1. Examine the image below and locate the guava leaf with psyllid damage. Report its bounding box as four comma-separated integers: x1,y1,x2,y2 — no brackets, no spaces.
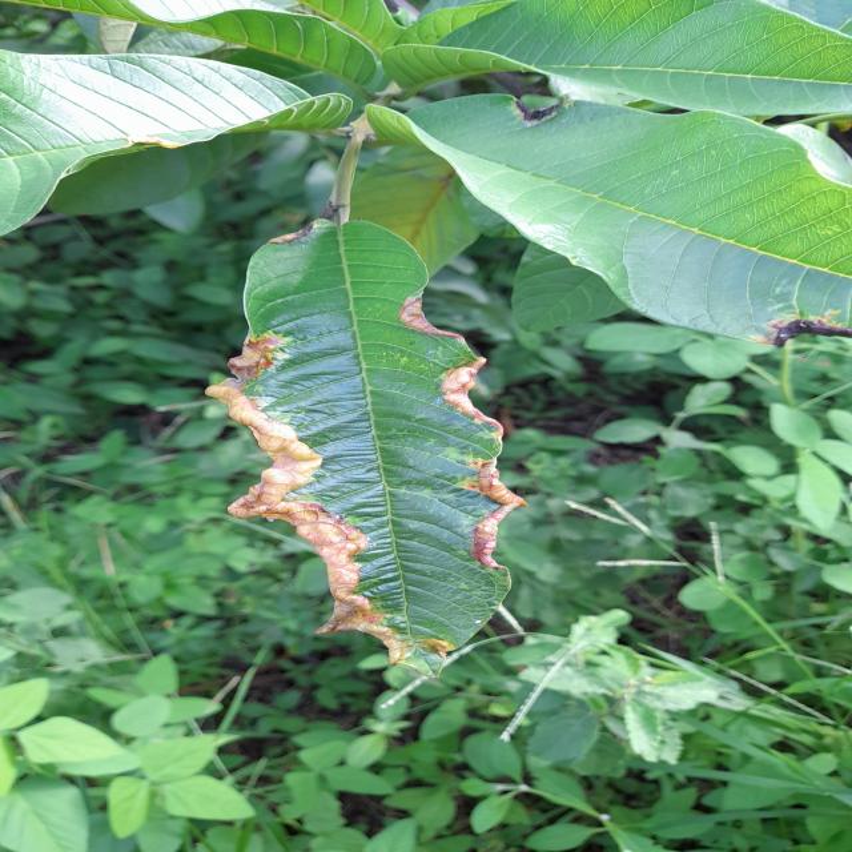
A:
150,212,531,704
